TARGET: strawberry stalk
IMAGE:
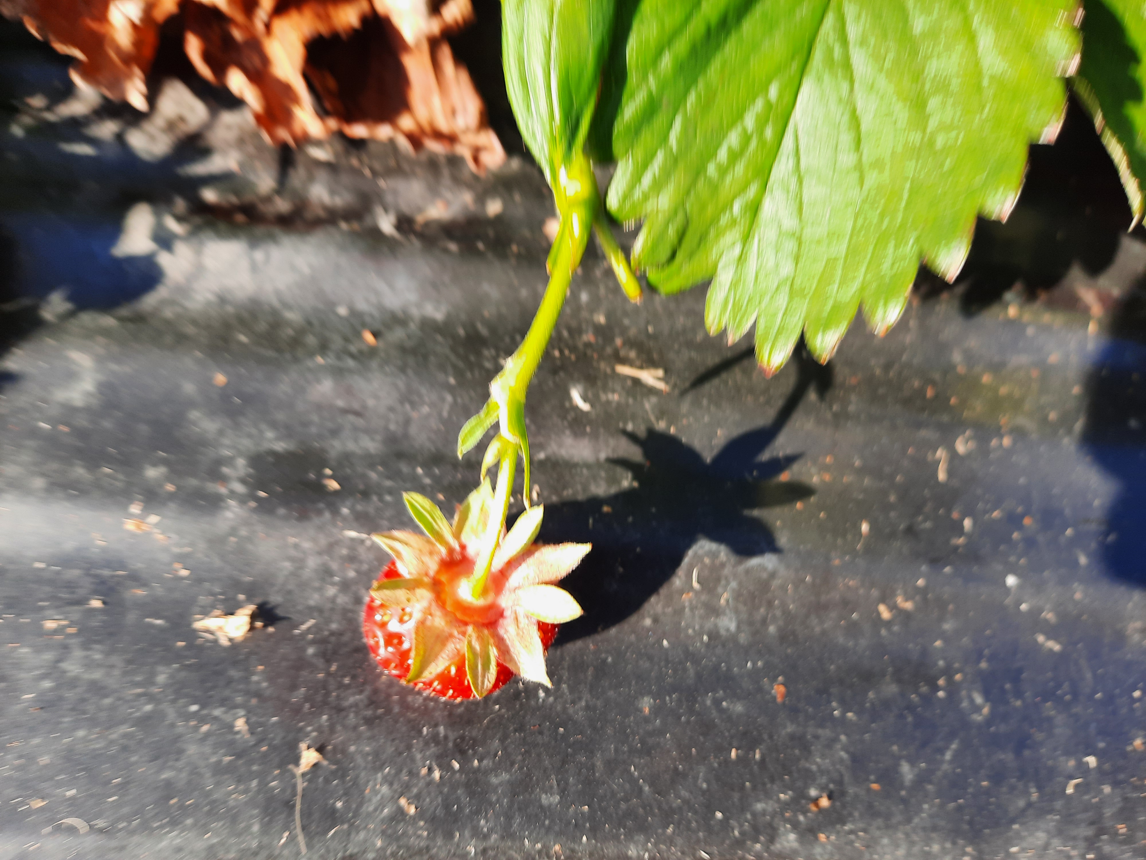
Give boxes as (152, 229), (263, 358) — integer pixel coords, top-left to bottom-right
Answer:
(453, 438), (525, 627)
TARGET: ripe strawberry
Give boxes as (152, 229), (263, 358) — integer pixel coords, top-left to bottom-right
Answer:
(367, 521), (558, 698)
